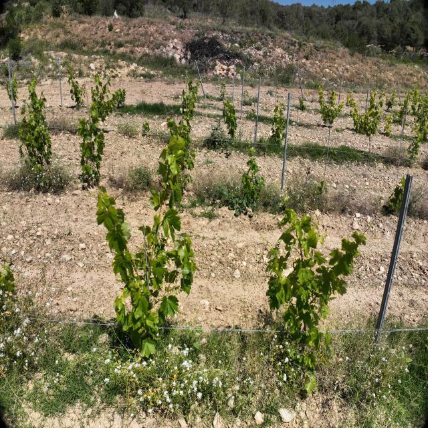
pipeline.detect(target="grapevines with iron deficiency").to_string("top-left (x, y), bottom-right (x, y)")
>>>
top-left (91, 120), bottom-right (201, 371)
top-left (253, 204), bottom-right (373, 387)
